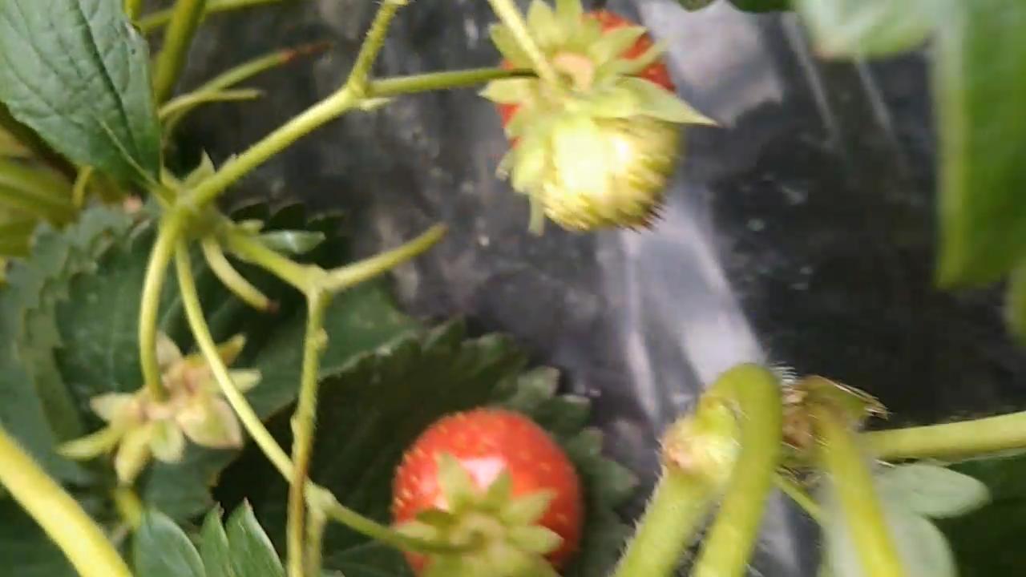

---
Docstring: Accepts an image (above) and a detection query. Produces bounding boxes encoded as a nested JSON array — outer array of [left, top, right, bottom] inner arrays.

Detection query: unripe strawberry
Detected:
[[529, 92, 677, 246]]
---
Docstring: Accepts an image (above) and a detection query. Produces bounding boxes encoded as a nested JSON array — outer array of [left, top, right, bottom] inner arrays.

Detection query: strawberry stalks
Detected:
[[330, 492, 491, 569], [478, 0, 582, 83]]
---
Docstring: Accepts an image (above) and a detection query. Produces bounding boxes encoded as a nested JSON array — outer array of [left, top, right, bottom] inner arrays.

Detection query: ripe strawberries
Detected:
[[494, 4, 679, 170], [372, 400, 592, 571]]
